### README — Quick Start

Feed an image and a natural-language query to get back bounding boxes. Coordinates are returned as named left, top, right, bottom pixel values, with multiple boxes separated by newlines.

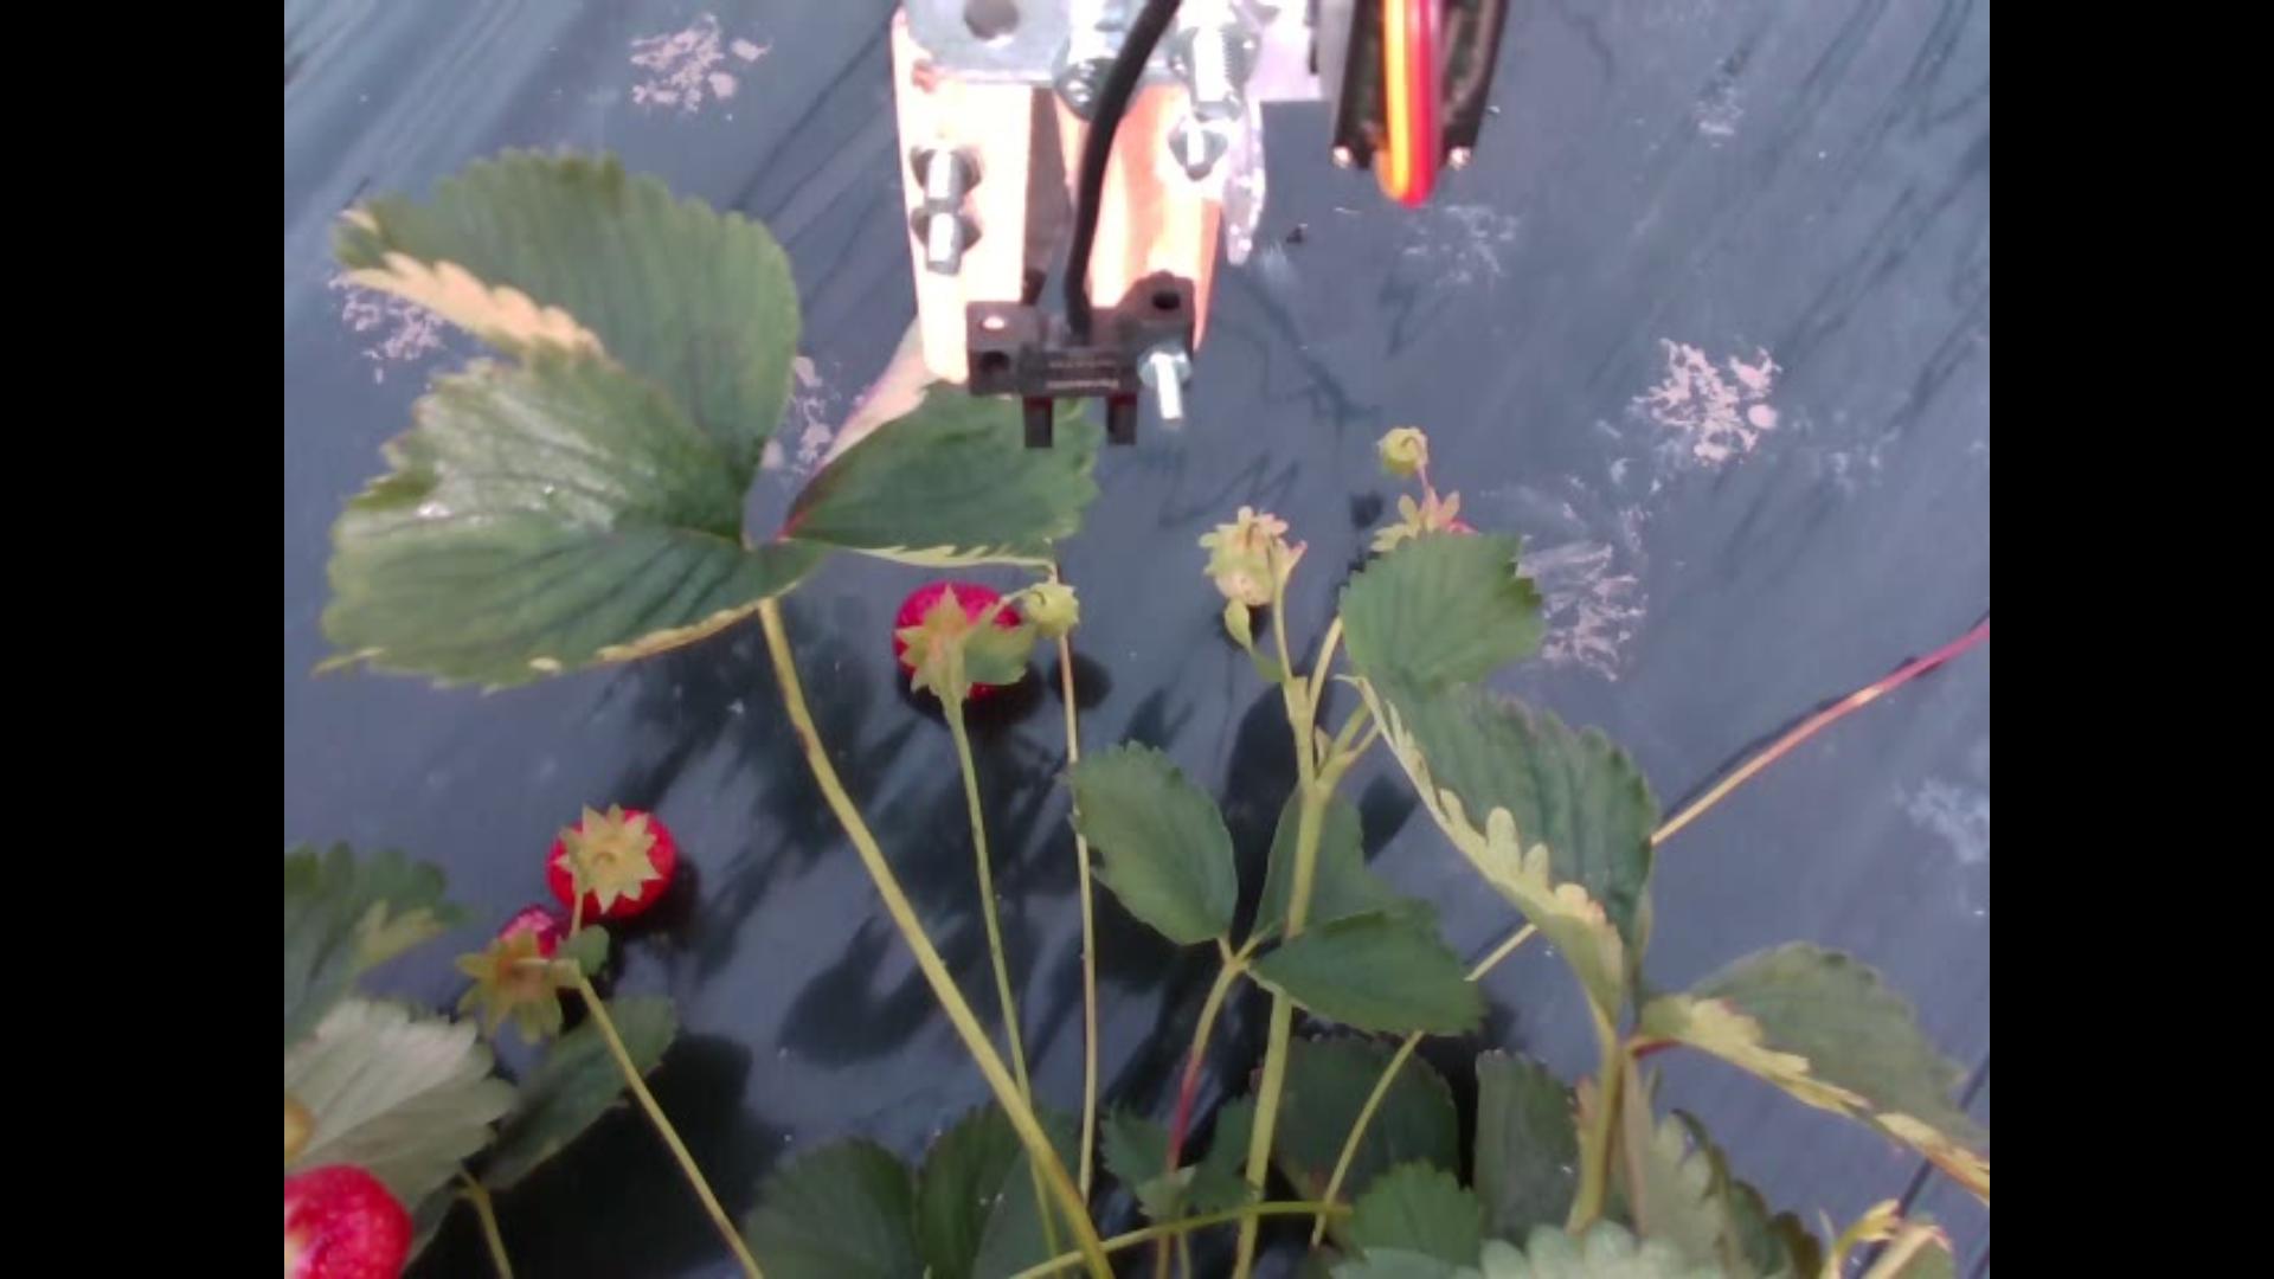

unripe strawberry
left=1199, top=511, right=1289, bottom=606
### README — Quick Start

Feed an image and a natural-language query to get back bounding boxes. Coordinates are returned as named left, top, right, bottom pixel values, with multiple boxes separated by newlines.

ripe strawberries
left=551, top=811, right=677, bottom=908
left=874, top=569, right=1036, bottom=704
left=285, top=1149, right=412, bottom=1274
left=486, top=899, right=613, bottom=1028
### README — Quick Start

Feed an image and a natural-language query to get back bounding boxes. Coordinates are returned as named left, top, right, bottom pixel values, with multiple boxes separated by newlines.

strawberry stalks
left=1377, top=423, right=1444, bottom=490
left=918, top=641, right=998, bottom=817
left=1239, top=529, right=1301, bottom=625
left=560, top=860, right=621, bottom=959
